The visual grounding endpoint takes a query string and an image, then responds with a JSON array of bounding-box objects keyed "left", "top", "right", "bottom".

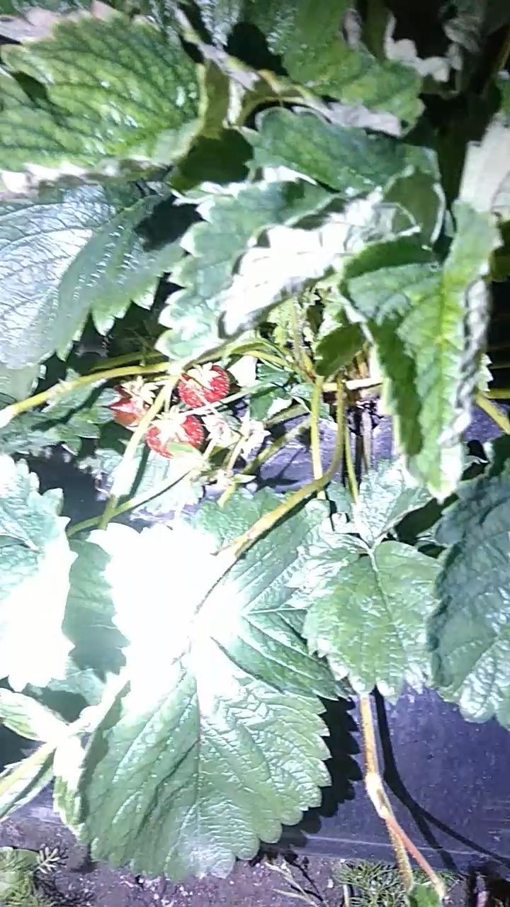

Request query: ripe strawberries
[
  {"left": 179, "top": 367, "right": 230, "bottom": 406},
  {"left": 113, "top": 368, "right": 162, "bottom": 432},
  {"left": 145, "top": 411, "right": 206, "bottom": 461}
]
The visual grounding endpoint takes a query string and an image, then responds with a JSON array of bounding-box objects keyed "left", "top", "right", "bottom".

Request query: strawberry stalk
[{"left": 153, "top": 389, "right": 245, "bottom": 424}]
